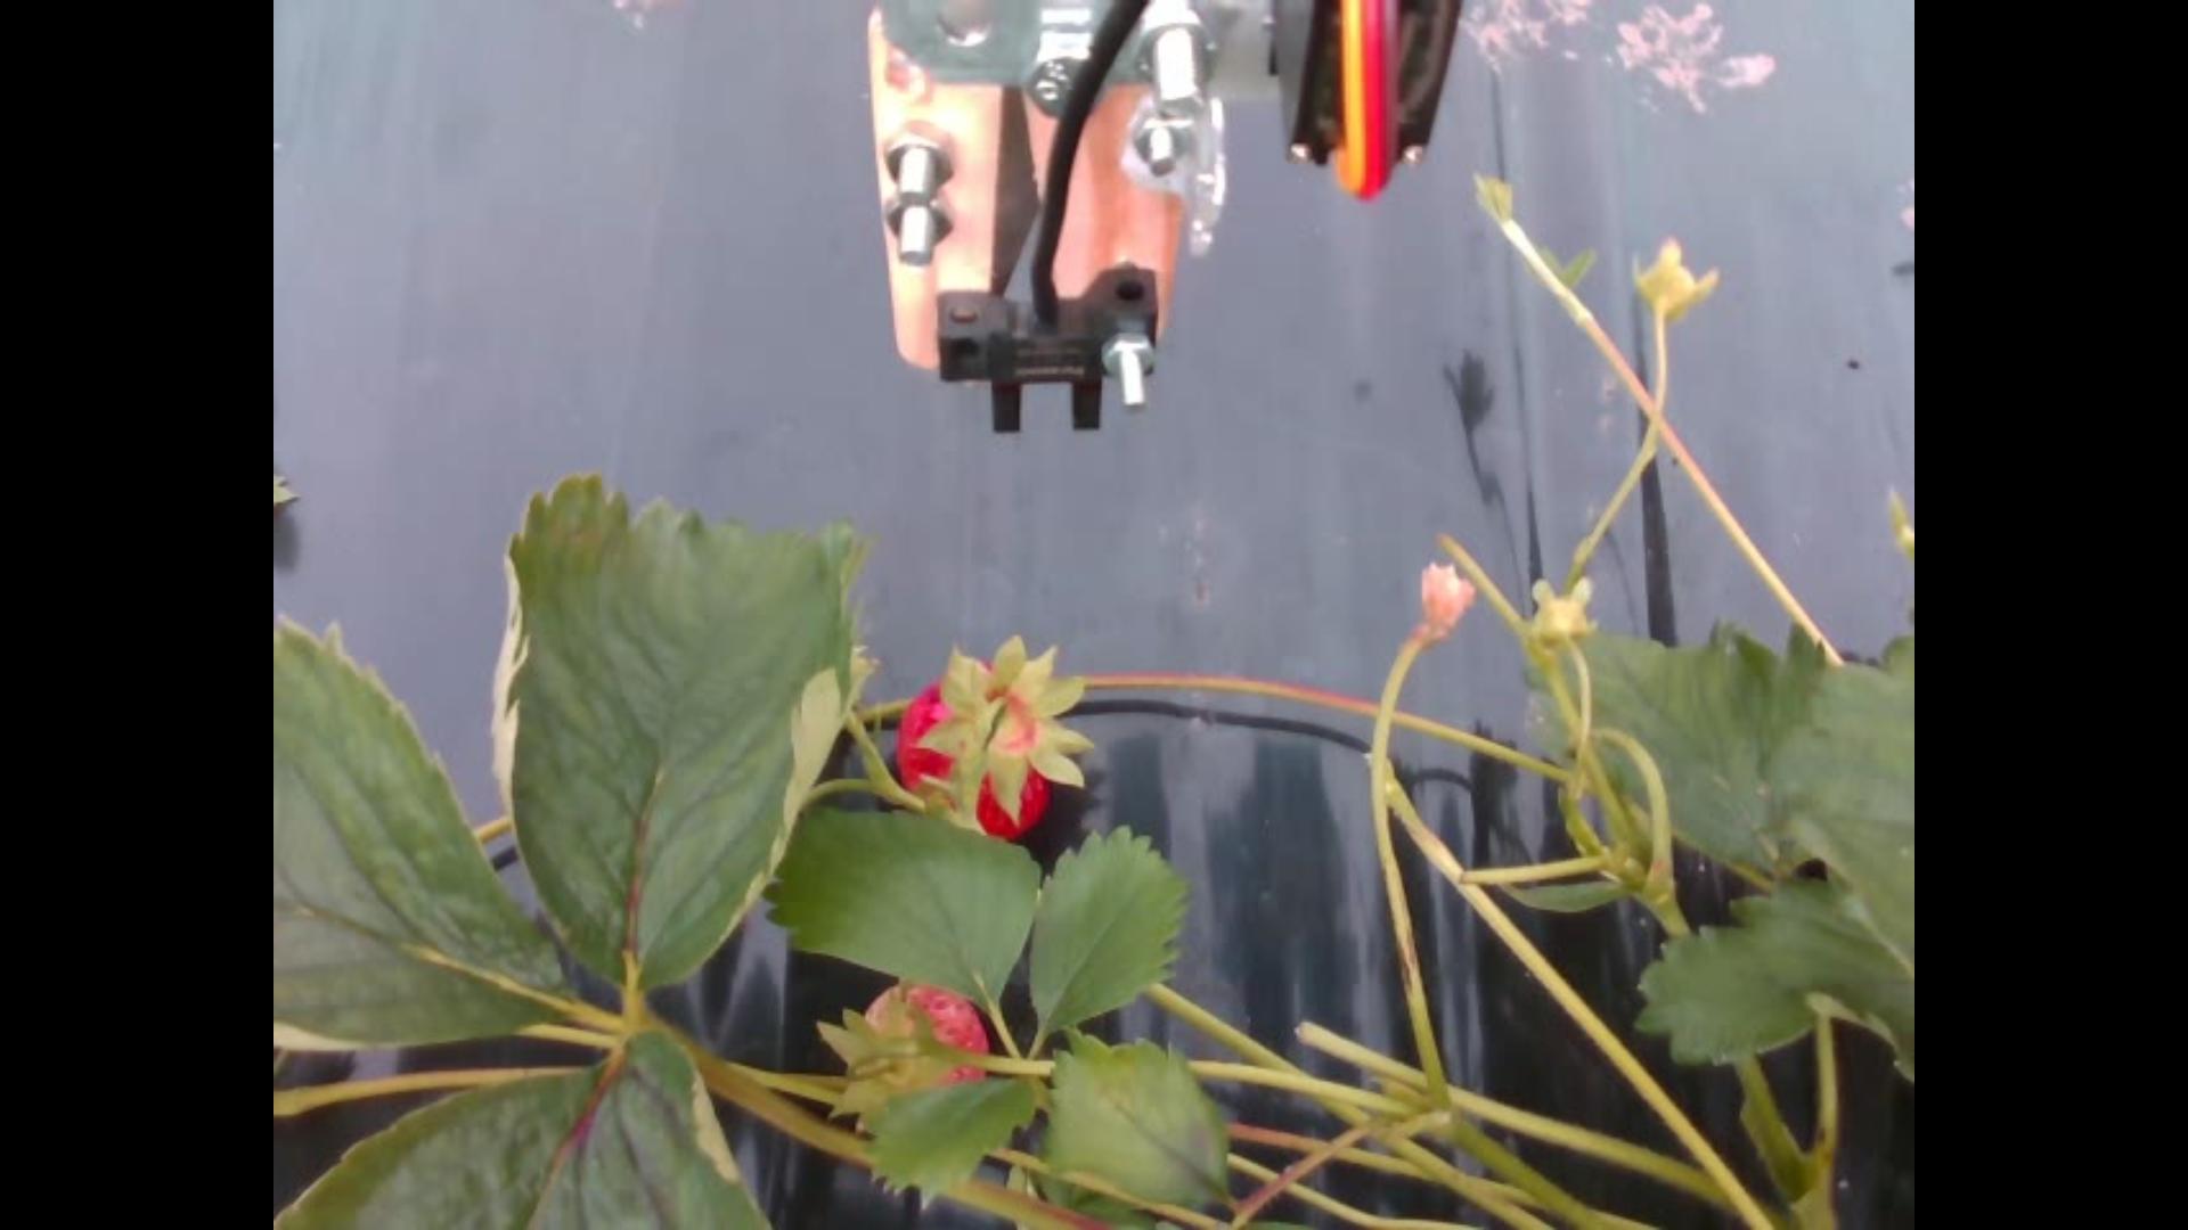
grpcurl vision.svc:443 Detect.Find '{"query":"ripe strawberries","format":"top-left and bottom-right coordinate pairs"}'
top-left (870, 660), bottom-right (1070, 827)
top-left (830, 975), bottom-right (1024, 1137)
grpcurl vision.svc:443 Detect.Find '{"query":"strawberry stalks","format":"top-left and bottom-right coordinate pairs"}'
top-left (851, 1041), bottom-right (1064, 1093)
top-left (949, 696), bottom-right (1026, 834)
top-left (1375, 569), bottom-right (1472, 704)
top-left (1630, 272), bottom-right (1715, 404)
